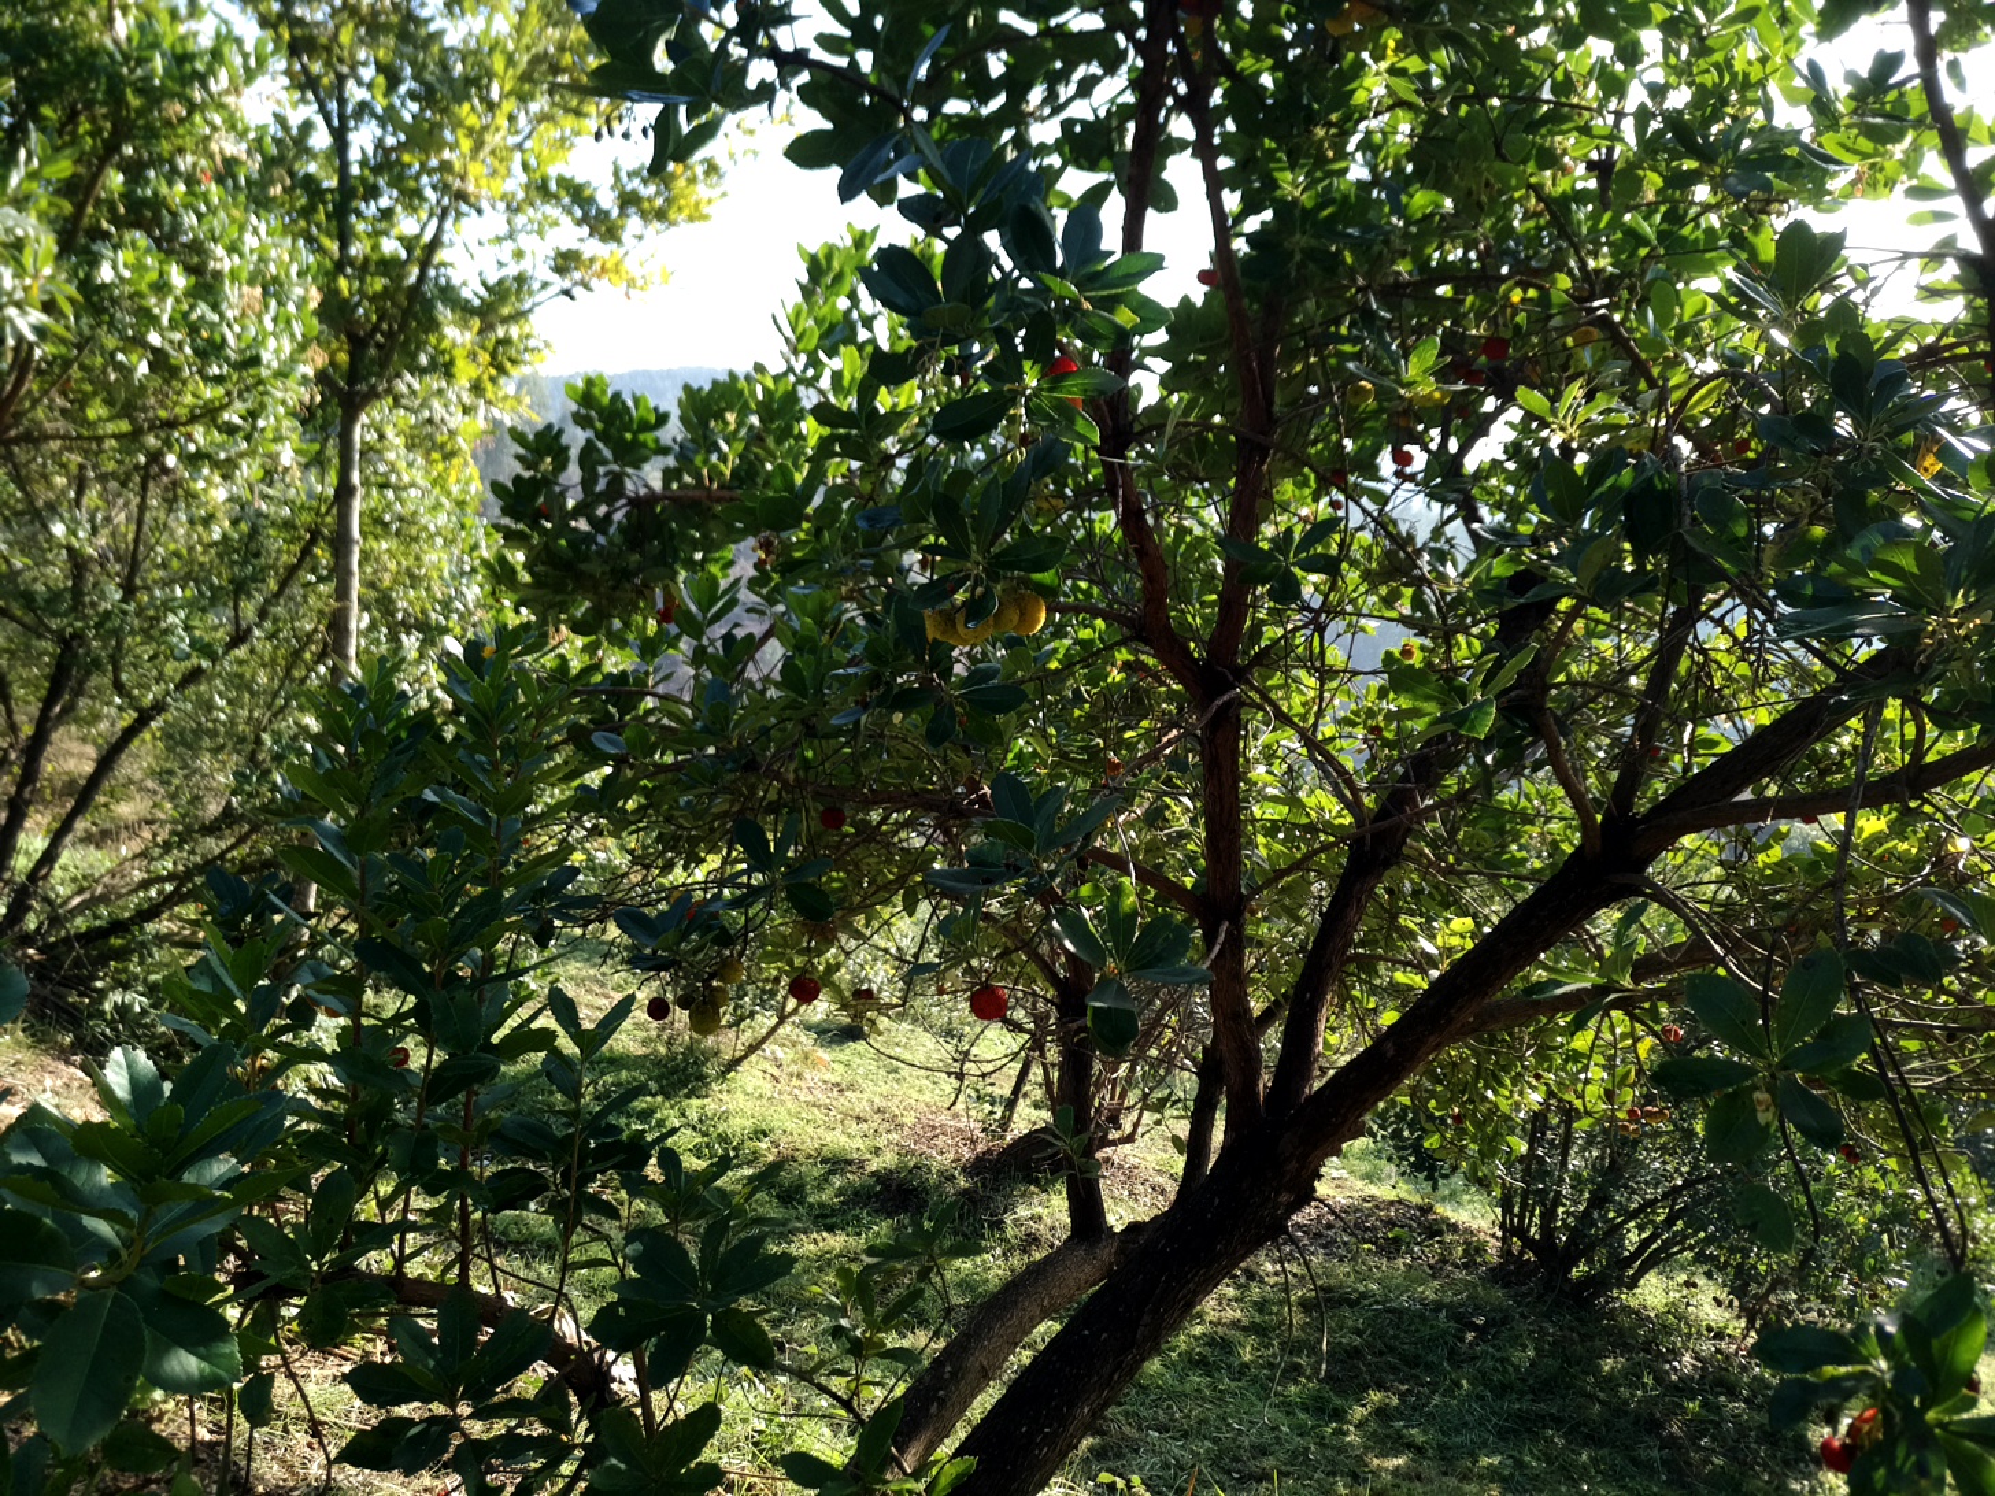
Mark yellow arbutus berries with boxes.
[928,605,968,649]
[956,603,993,641]
[1326,13,1355,36]
[1643,1106,1661,1123]
[1400,646,1415,660]
[991,590,1020,631]
[1013,591,1047,636]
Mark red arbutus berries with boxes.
[646,996,670,1021]
[660,601,678,622]
[821,805,847,831]
[1650,747,1660,757]
[1627,1107,1641,1120]
[1484,337,1511,362]
[1841,1143,1855,1155]
[1371,725,1382,736]
[1465,369,1486,385]
[1665,1026,1682,1043]
[390,1044,410,1066]
[1198,267,1220,284]
[1940,916,1957,932]
[1049,356,1081,380]
[969,982,1009,1020]
[790,975,820,1004]
[862,988,873,999]
[1816,1437,1859,1472]
[1735,436,1751,454]
[1329,467,1347,486]
[1801,815,1817,825]
[1392,449,1413,467]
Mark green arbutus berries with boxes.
[709,984,729,1007]
[1618,1122,1631,1135]
[688,997,721,1035]
[1629,1124,1641,1138]
[717,953,743,984]
[1574,326,1597,345]
[1347,380,1376,407]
